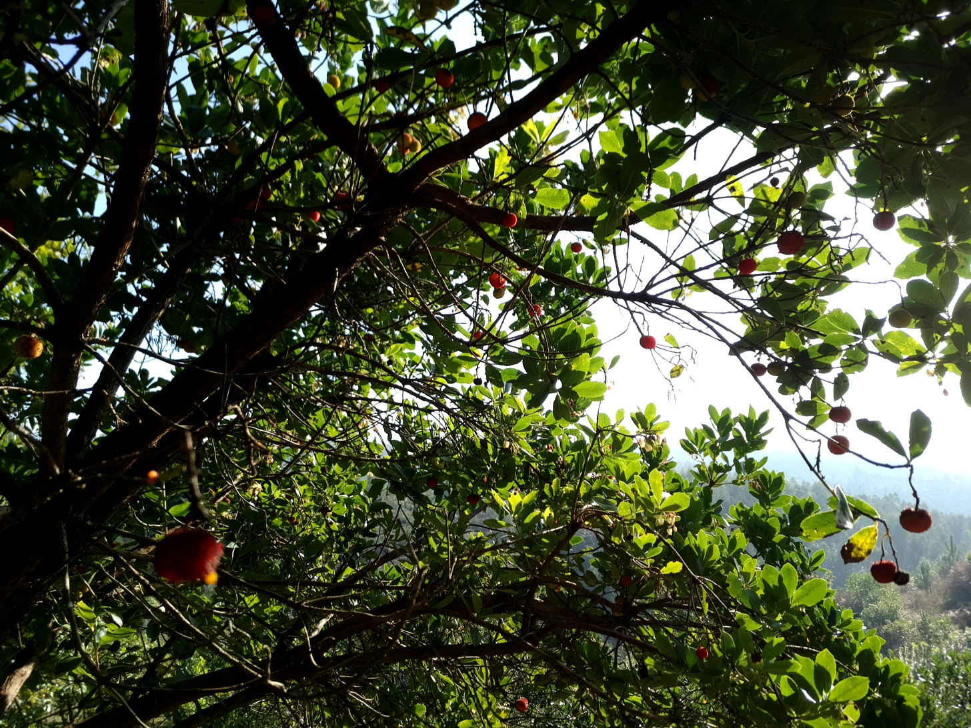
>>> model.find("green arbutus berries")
[768,361,785,377]
[787,192,805,208]
[890,309,912,328]
[830,94,857,119]
[492,287,504,299]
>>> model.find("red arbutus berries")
[489,272,505,289]
[899,507,931,533]
[467,112,488,132]
[503,213,518,229]
[435,68,454,88]
[828,433,849,456]
[829,405,852,424]
[571,242,582,253]
[148,525,225,589]
[306,211,321,223]
[515,696,530,711]
[777,231,804,255]
[739,258,757,275]
[873,211,896,230]
[750,362,767,377]
[695,646,709,659]
[639,335,656,349]
[869,559,896,584]
[620,574,633,586]
[473,331,482,340]
[528,304,542,317]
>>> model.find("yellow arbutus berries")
[329,75,341,89]
[398,133,412,147]
[411,138,422,153]
[15,334,44,358]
